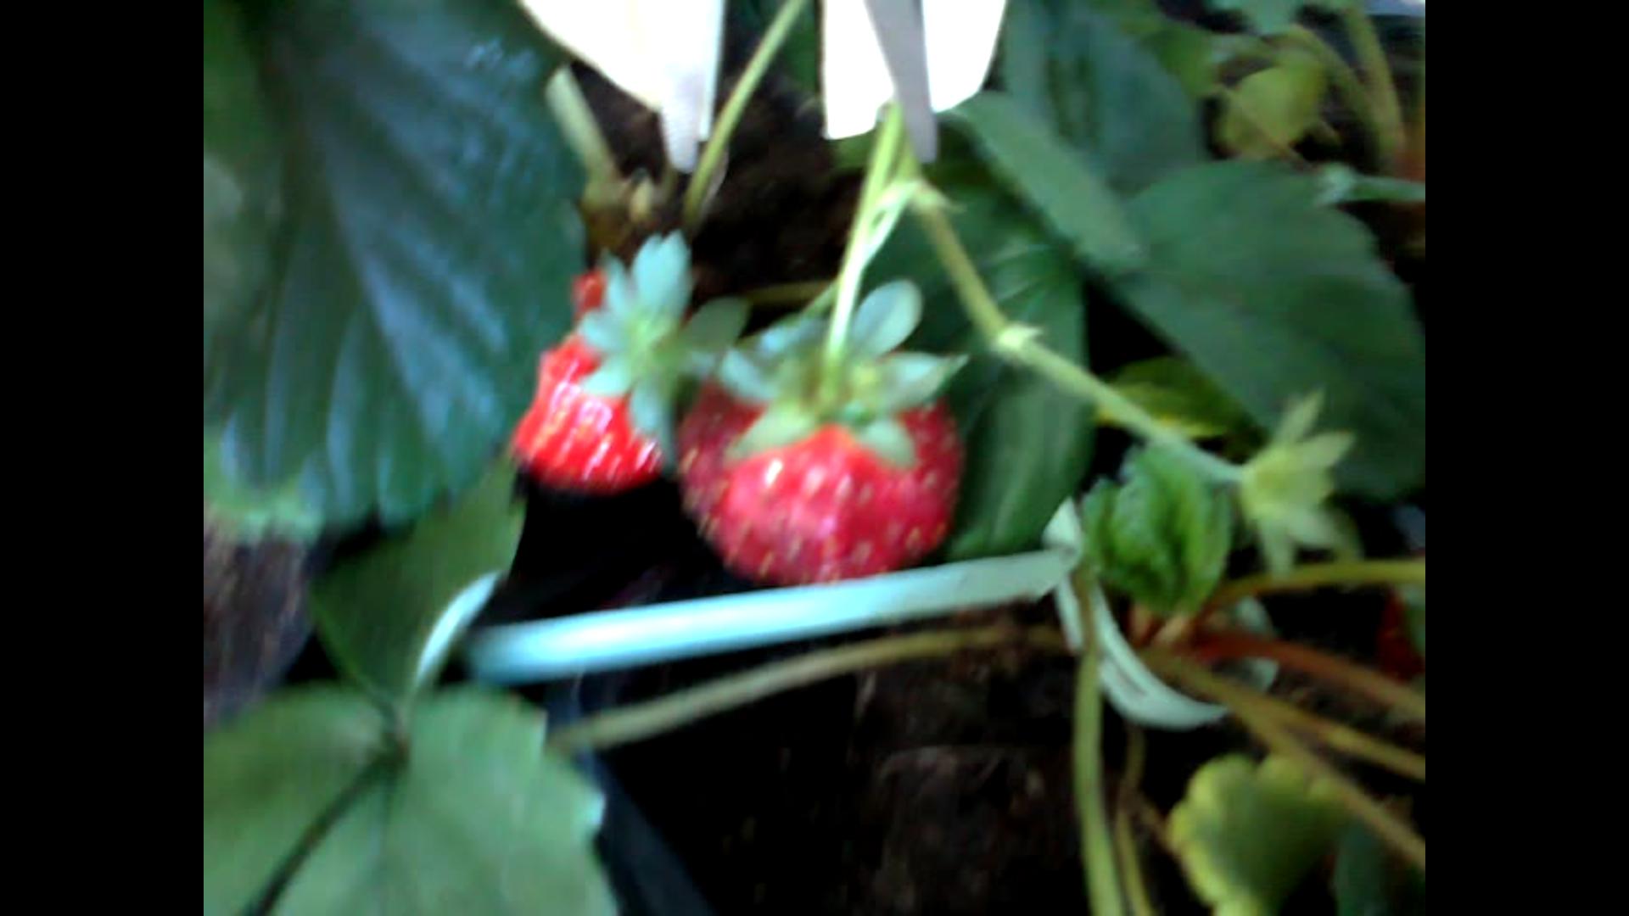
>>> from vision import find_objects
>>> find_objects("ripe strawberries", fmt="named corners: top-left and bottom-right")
top-left (708, 341), bottom-right (975, 571)
top-left (479, 223), bottom-right (686, 478)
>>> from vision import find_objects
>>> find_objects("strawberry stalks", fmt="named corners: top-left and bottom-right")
top-left (811, 110), bottom-right (904, 420)
top-left (1117, 397), bottom-right (1286, 498)
top-left (622, 75), bottom-right (757, 365)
